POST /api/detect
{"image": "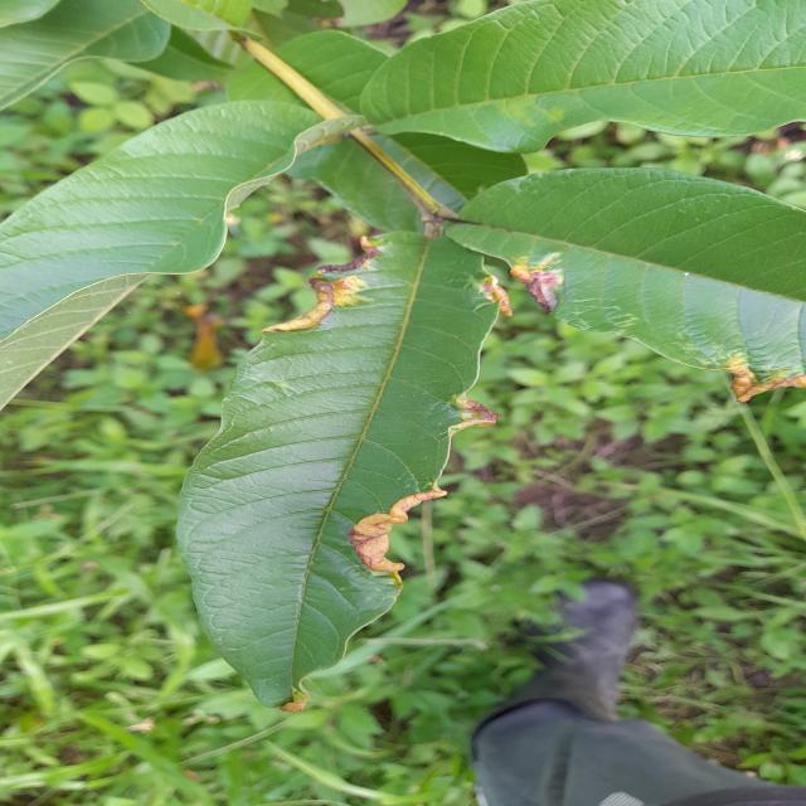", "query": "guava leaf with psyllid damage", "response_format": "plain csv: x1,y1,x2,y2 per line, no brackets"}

159,217,527,730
